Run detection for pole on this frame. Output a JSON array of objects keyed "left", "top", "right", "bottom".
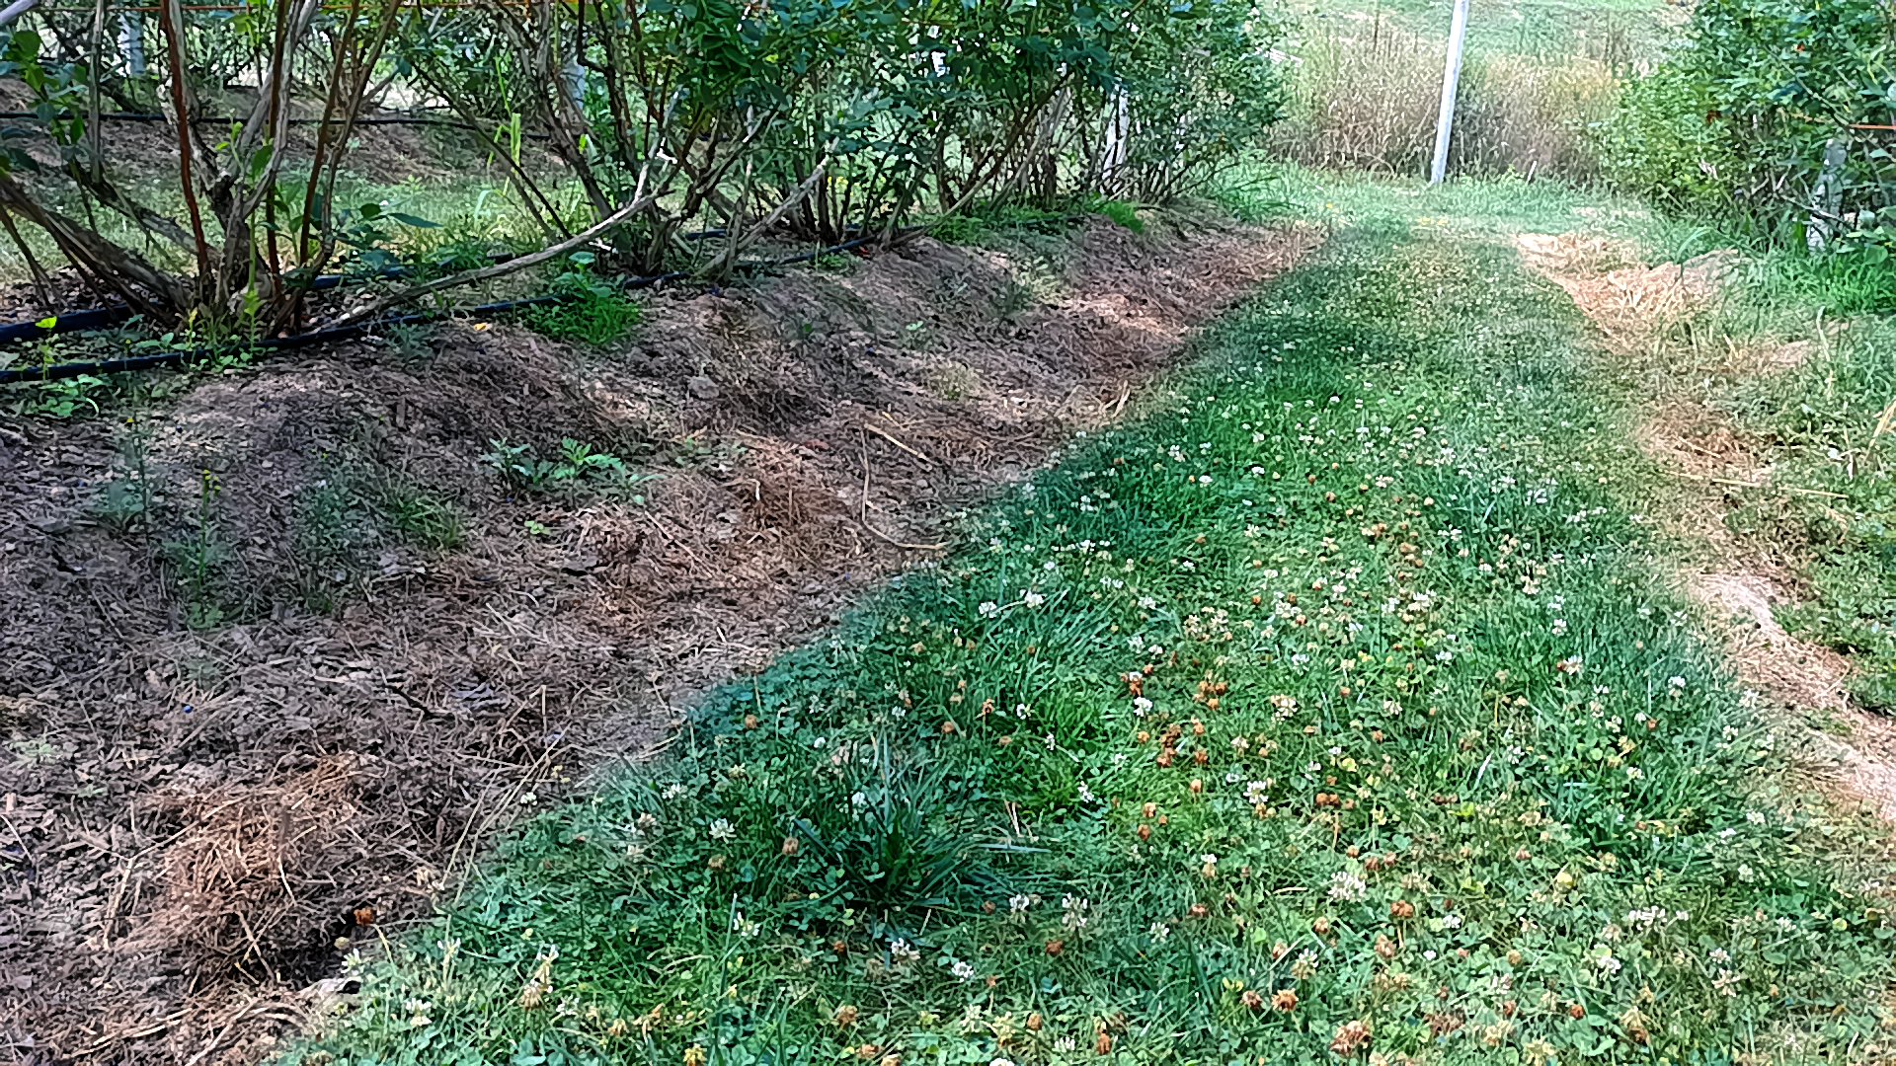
[{"left": 1430, "top": 0, "right": 1470, "bottom": 187}]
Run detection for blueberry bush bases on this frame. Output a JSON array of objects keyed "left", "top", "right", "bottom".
[
  {"left": 935, "top": 176, "right": 1015, "bottom": 240},
  {"left": 1022, "top": 182, "right": 1093, "bottom": 230},
  {"left": 513, "top": 189, "right": 763, "bottom": 328},
  {"left": 780, "top": 183, "right": 926, "bottom": 272},
  {"left": 14, "top": 192, "right": 386, "bottom": 404}
]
